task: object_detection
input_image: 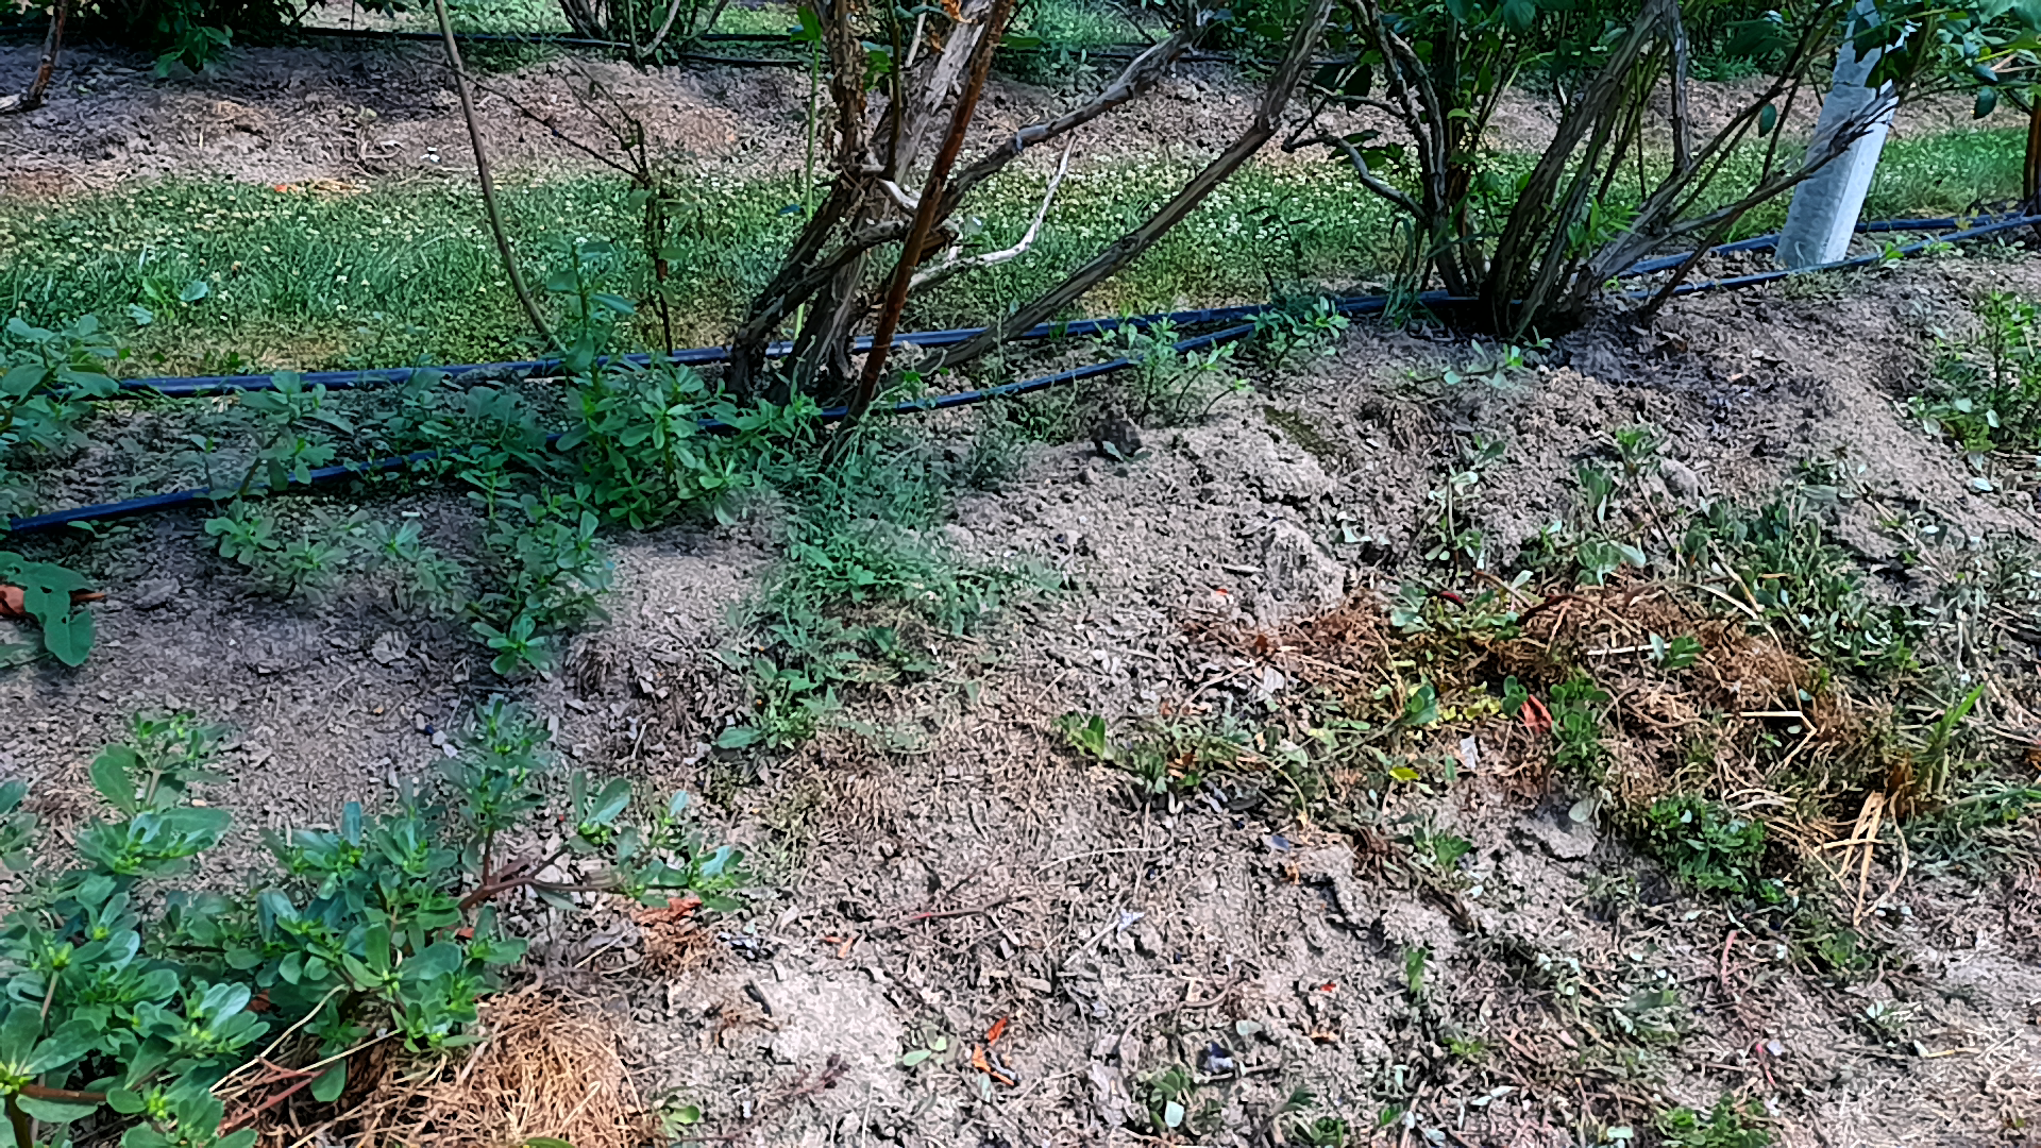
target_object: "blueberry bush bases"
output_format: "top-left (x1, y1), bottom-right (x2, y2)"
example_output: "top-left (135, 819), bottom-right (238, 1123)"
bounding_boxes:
top-left (678, 215), bottom-right (1069, 512)
top-left (1349, 176), bottom-right (1717, 389)
top-left (541, 1), bottom-right (740, 73)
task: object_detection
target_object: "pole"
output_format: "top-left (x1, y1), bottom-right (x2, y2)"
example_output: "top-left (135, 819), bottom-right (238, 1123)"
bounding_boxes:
top-left (1788, 9), bottom-right (1913, 259)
